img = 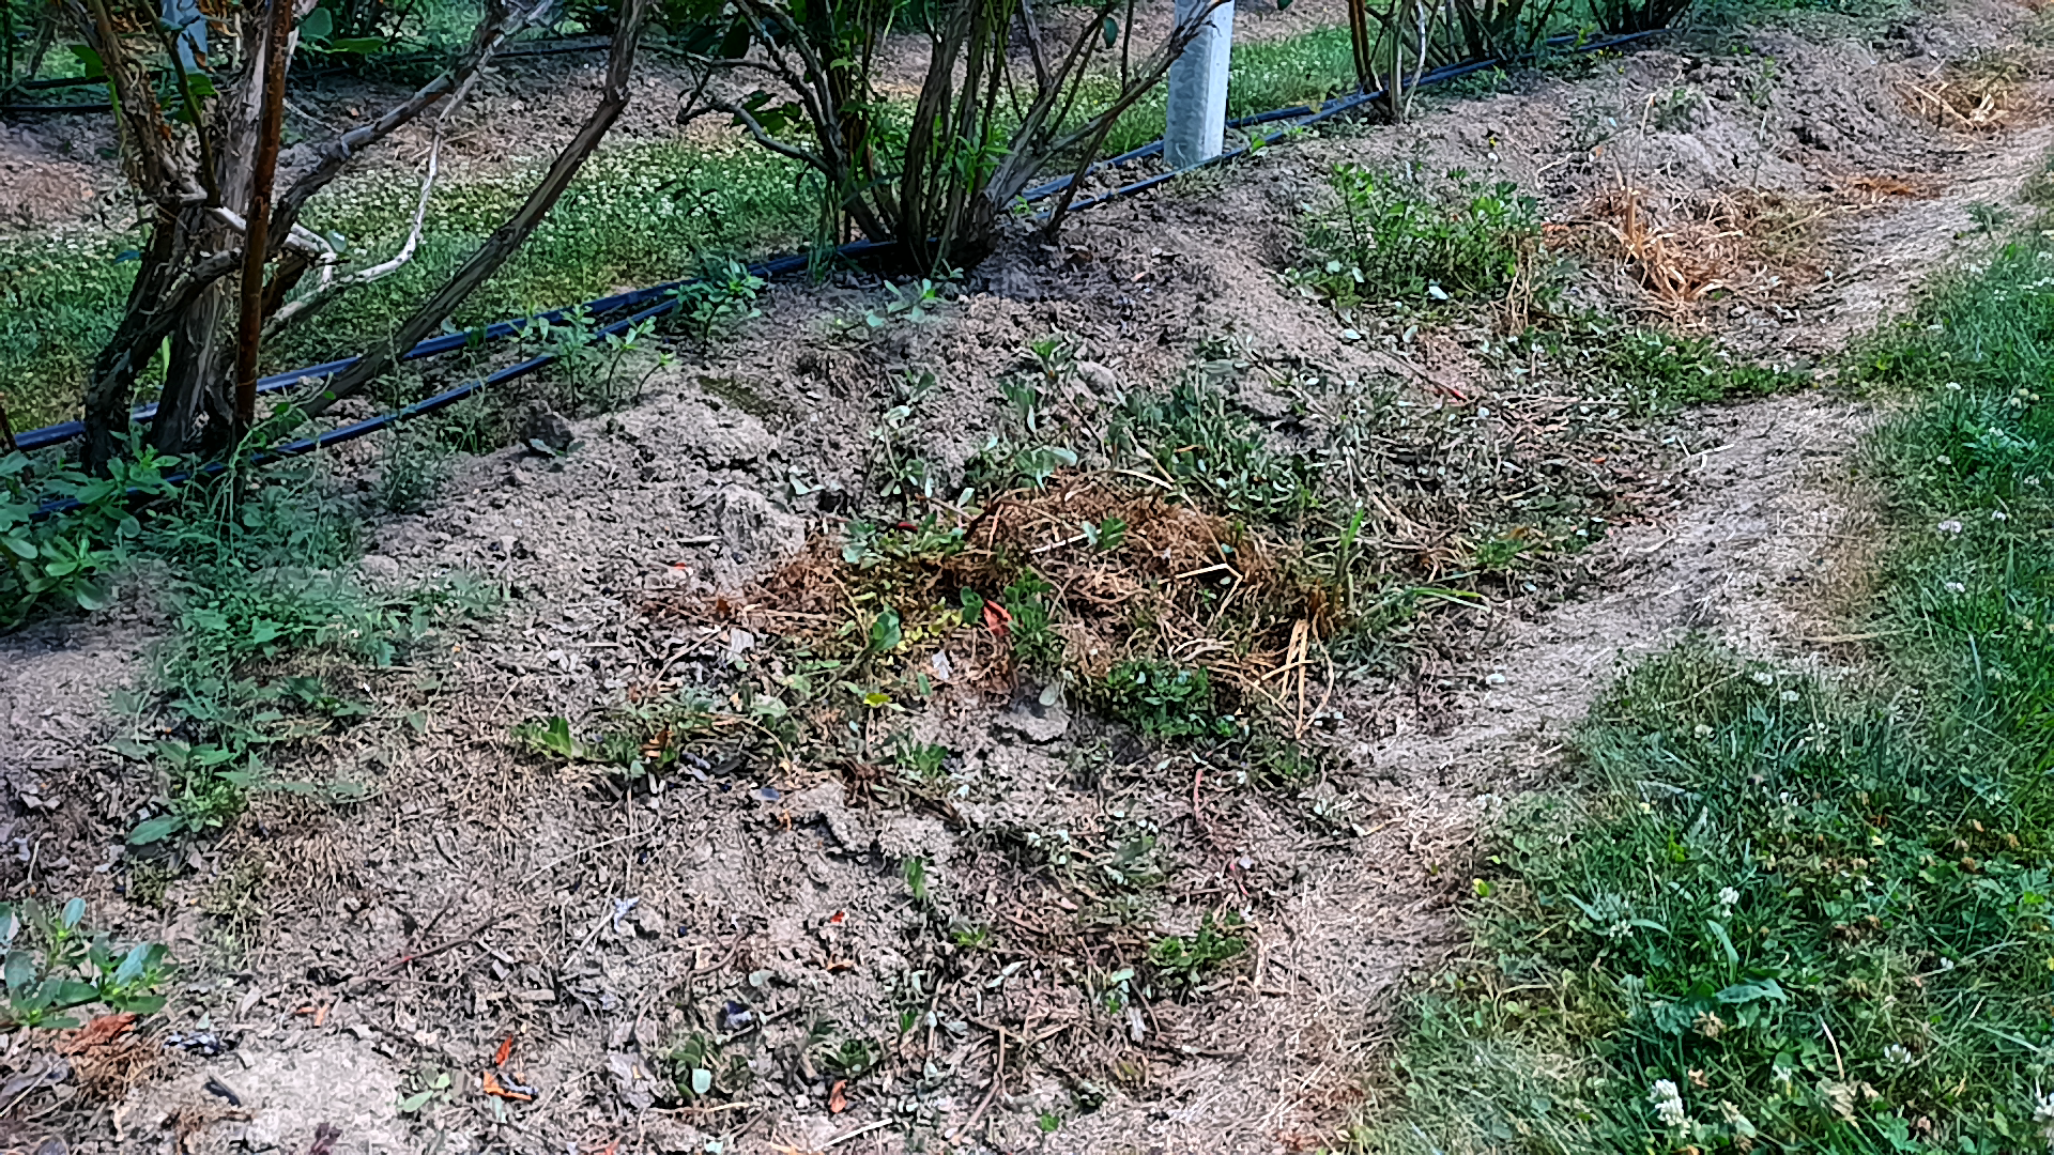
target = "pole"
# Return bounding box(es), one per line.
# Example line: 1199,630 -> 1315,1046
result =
1164,4 -> 1234,159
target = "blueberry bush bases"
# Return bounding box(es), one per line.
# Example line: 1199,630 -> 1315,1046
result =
1324,54 -> 1435,139
1577,2 -> 1694,70
752,131 -> 1093,315
40,255 -> 407,567
1442,25 -> 1553,100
